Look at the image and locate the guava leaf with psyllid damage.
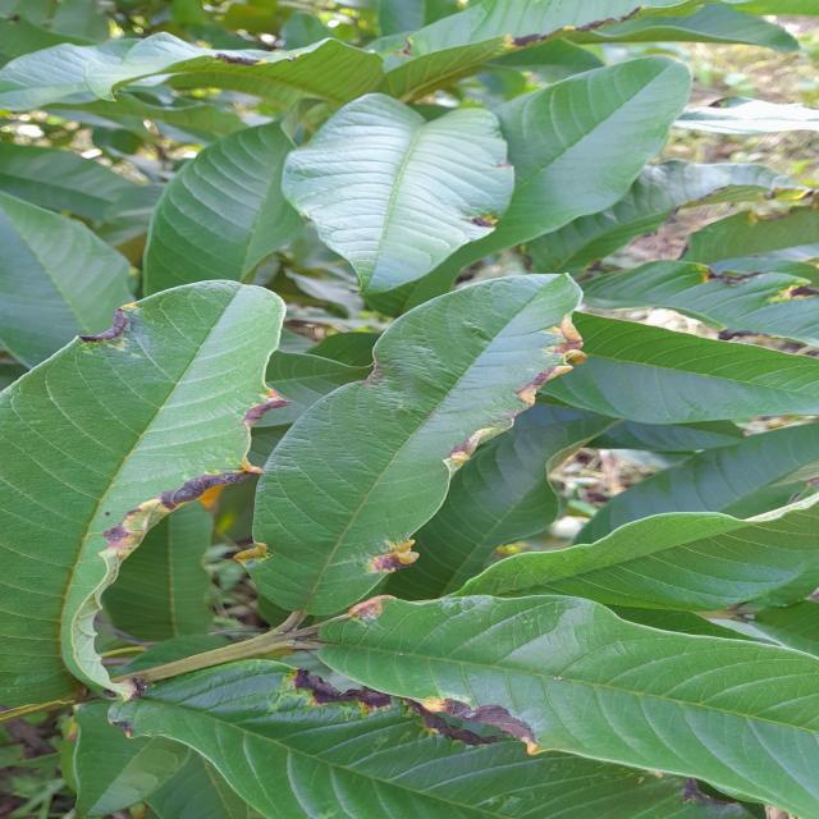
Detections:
[237,262,605,623]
